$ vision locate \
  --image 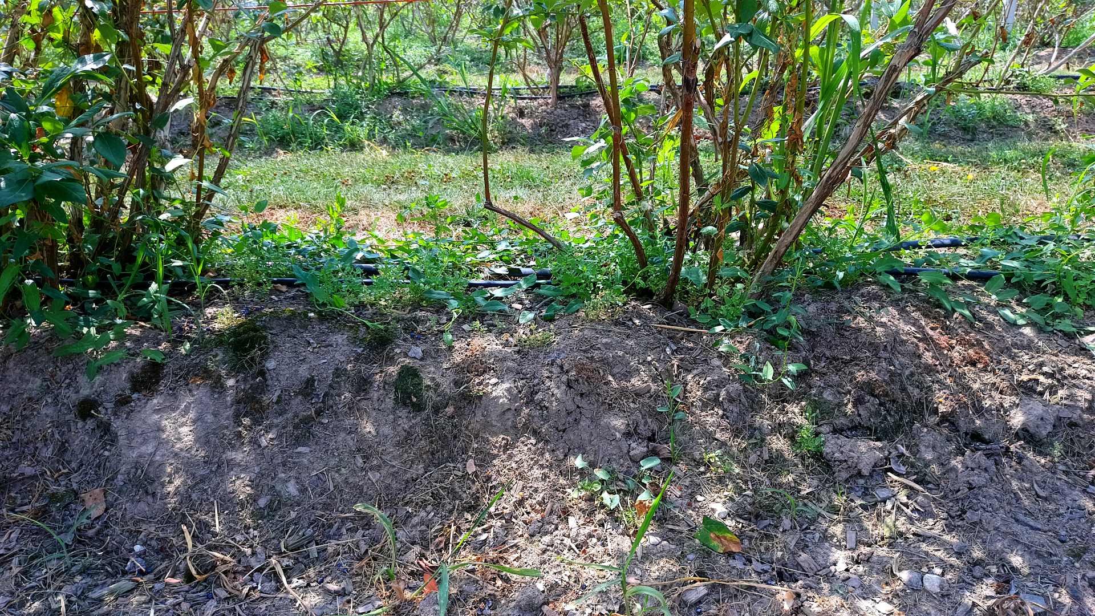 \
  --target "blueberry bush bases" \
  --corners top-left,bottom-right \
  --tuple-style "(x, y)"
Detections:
(538, 180), (860, 343)
(0, 132), (245, 366)
(328, 54), (429, 116)
(525, 70), (584, 122)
